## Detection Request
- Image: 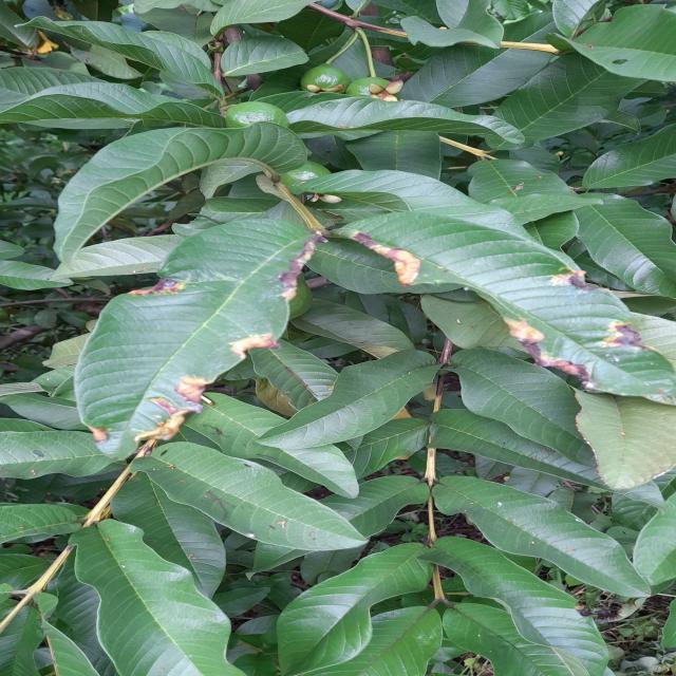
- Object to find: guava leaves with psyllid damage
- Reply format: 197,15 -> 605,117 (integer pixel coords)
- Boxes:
337,200 -> 676,405
40,205 -> 325,484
